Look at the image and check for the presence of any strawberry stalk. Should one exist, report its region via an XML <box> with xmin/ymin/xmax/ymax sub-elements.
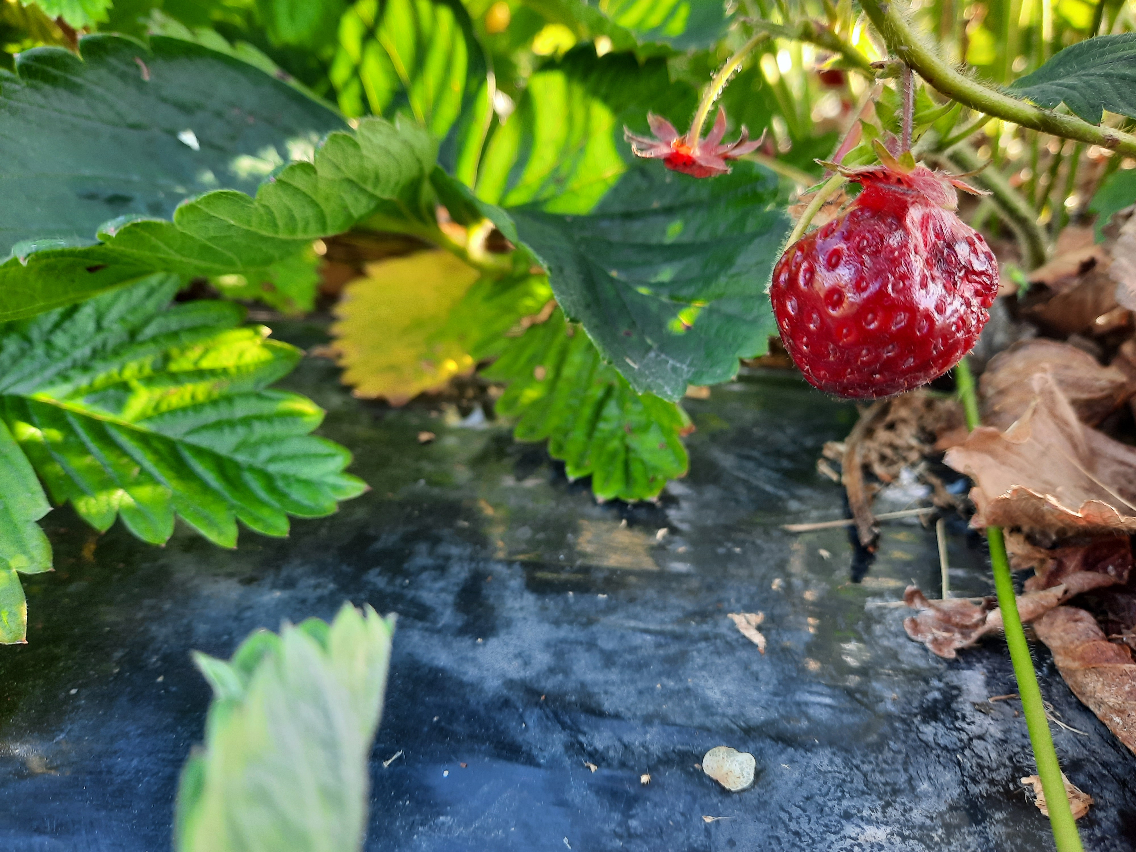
<box><xmin>875</xmin><ymin>48</ymin><xmax>943</xmax><ymax>223</ymax></box>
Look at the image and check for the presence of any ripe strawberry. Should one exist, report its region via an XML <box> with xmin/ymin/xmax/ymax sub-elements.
<box><xmin>765</xmin><ymin>178</ymin><xmax>1002</xmax><ymax>378</ymax></box>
